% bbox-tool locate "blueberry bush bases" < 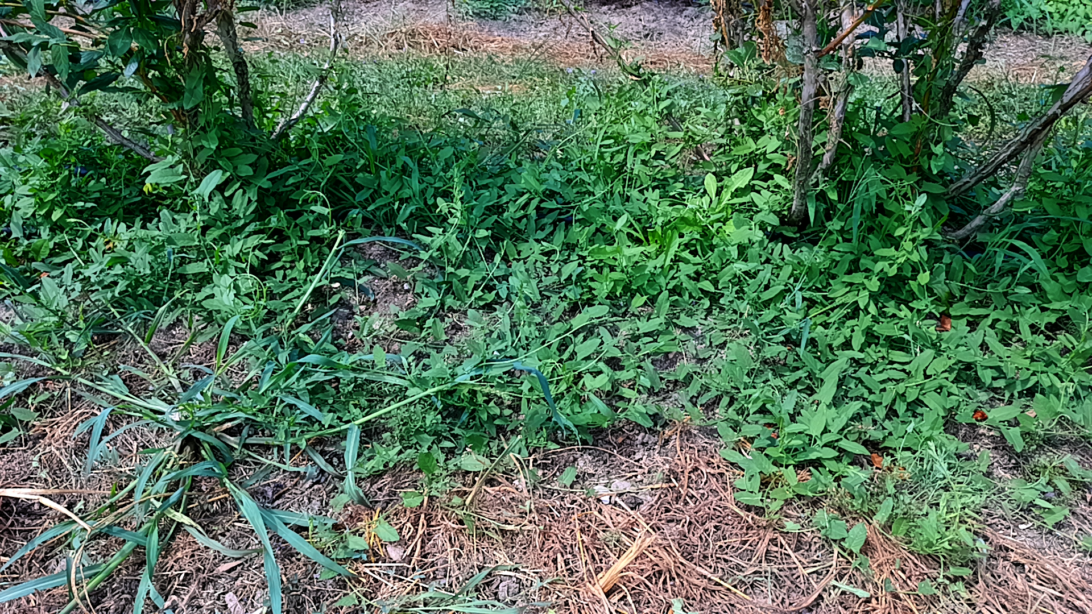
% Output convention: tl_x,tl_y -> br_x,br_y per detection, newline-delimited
755,77 -> 1039,298
121,44 -> 342,260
